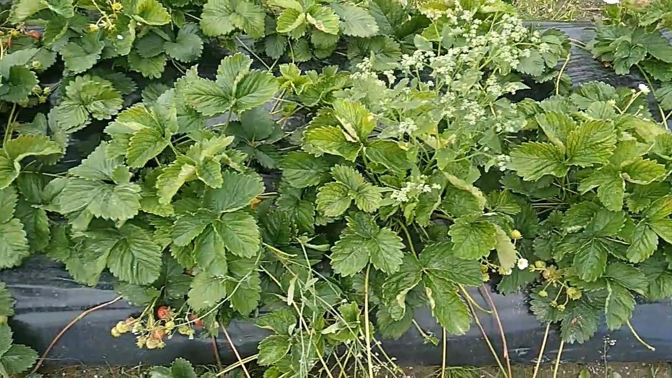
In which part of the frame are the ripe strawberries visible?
[158,306,172,319]
[151,328,164,339]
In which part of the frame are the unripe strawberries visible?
[111,328,120,337]
[116,322,126,333]
[510,229,522,239]
[539,291,549,297]
[146,338,159,349]
[179,326,191,334]
[536,260,547,268]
